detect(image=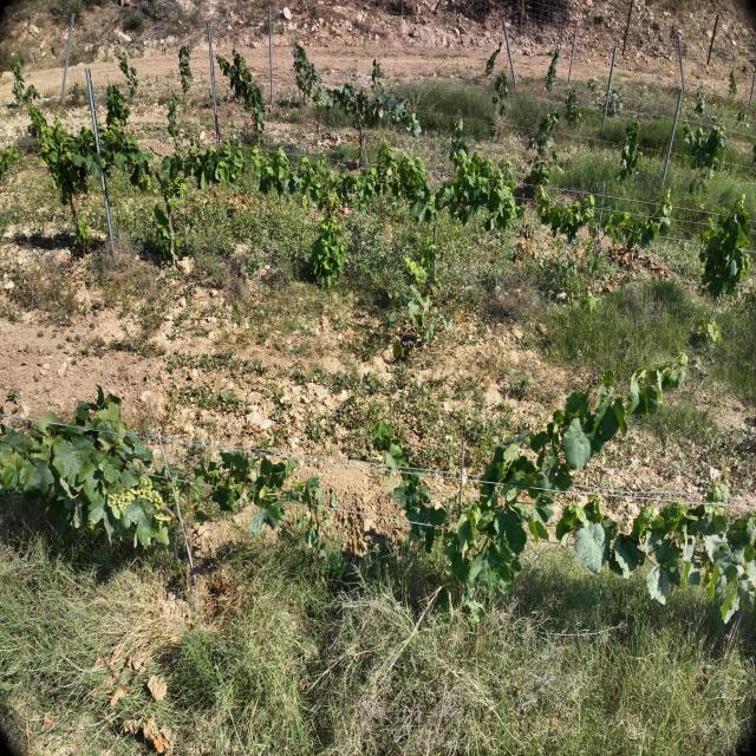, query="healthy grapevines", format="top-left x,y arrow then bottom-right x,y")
365,384 -> 756,640
0,384 -> 328,606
